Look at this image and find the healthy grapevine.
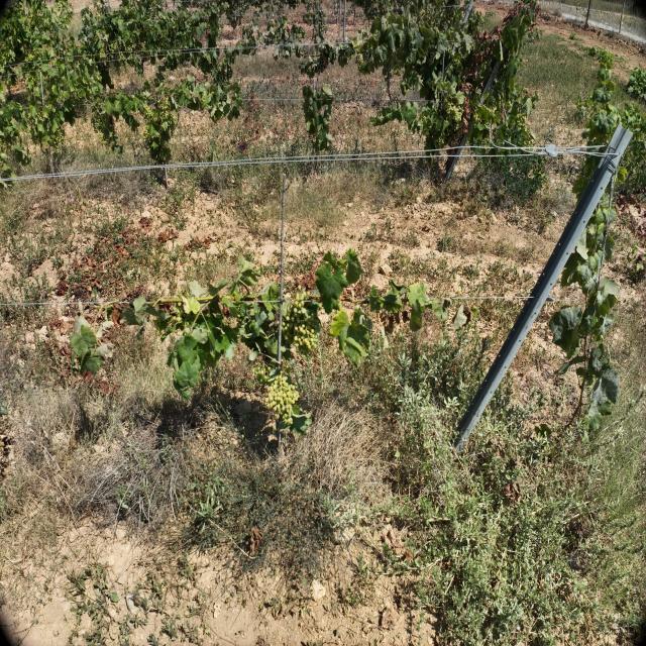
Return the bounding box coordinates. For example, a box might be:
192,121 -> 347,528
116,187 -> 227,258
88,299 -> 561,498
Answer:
545,166 -> 631,457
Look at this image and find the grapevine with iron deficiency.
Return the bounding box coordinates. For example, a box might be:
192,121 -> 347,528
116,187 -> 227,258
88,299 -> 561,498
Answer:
116,251 -> 448,488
